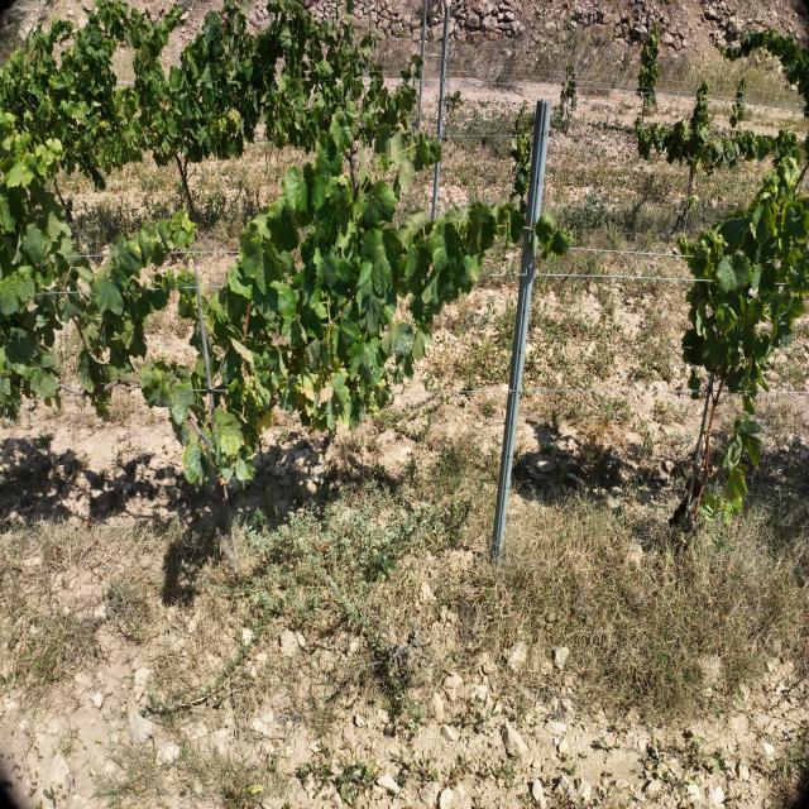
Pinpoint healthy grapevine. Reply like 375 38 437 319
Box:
652 178 809 552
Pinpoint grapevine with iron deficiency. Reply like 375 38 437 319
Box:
35 151 497 600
